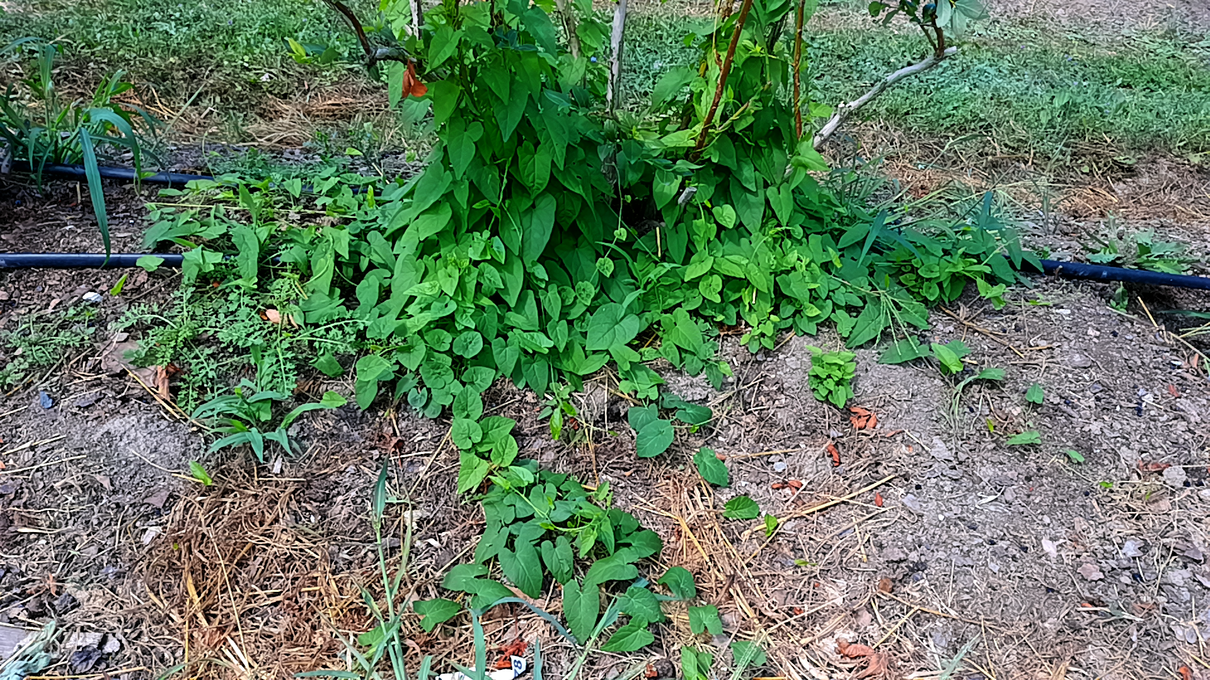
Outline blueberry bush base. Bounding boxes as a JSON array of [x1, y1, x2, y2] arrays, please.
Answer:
[[379, 26, 781, 323]]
